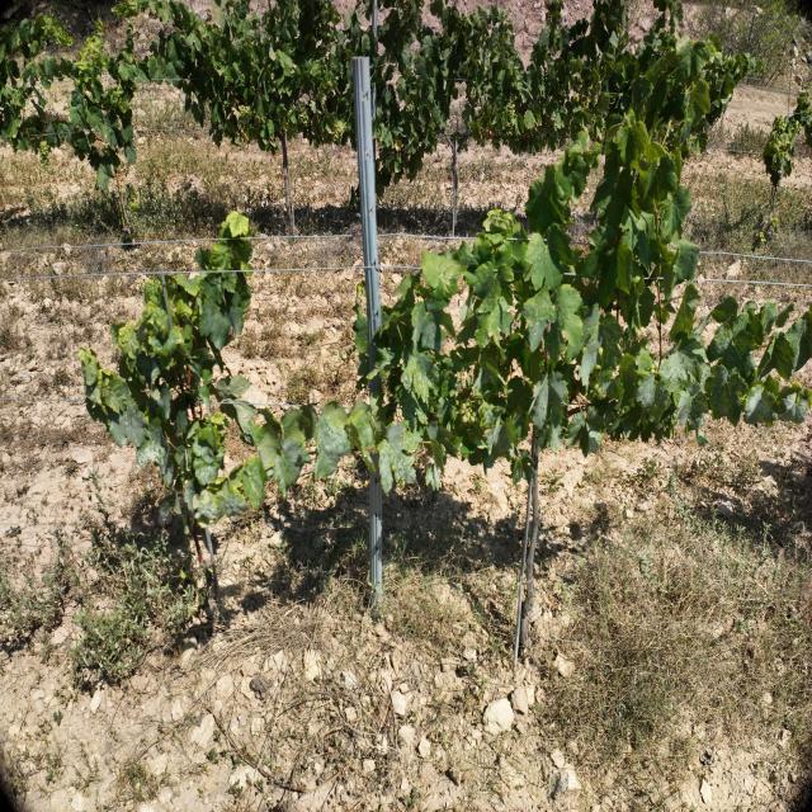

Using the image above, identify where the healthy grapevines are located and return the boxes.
[320,117,812,700]
[68,198,298,666]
